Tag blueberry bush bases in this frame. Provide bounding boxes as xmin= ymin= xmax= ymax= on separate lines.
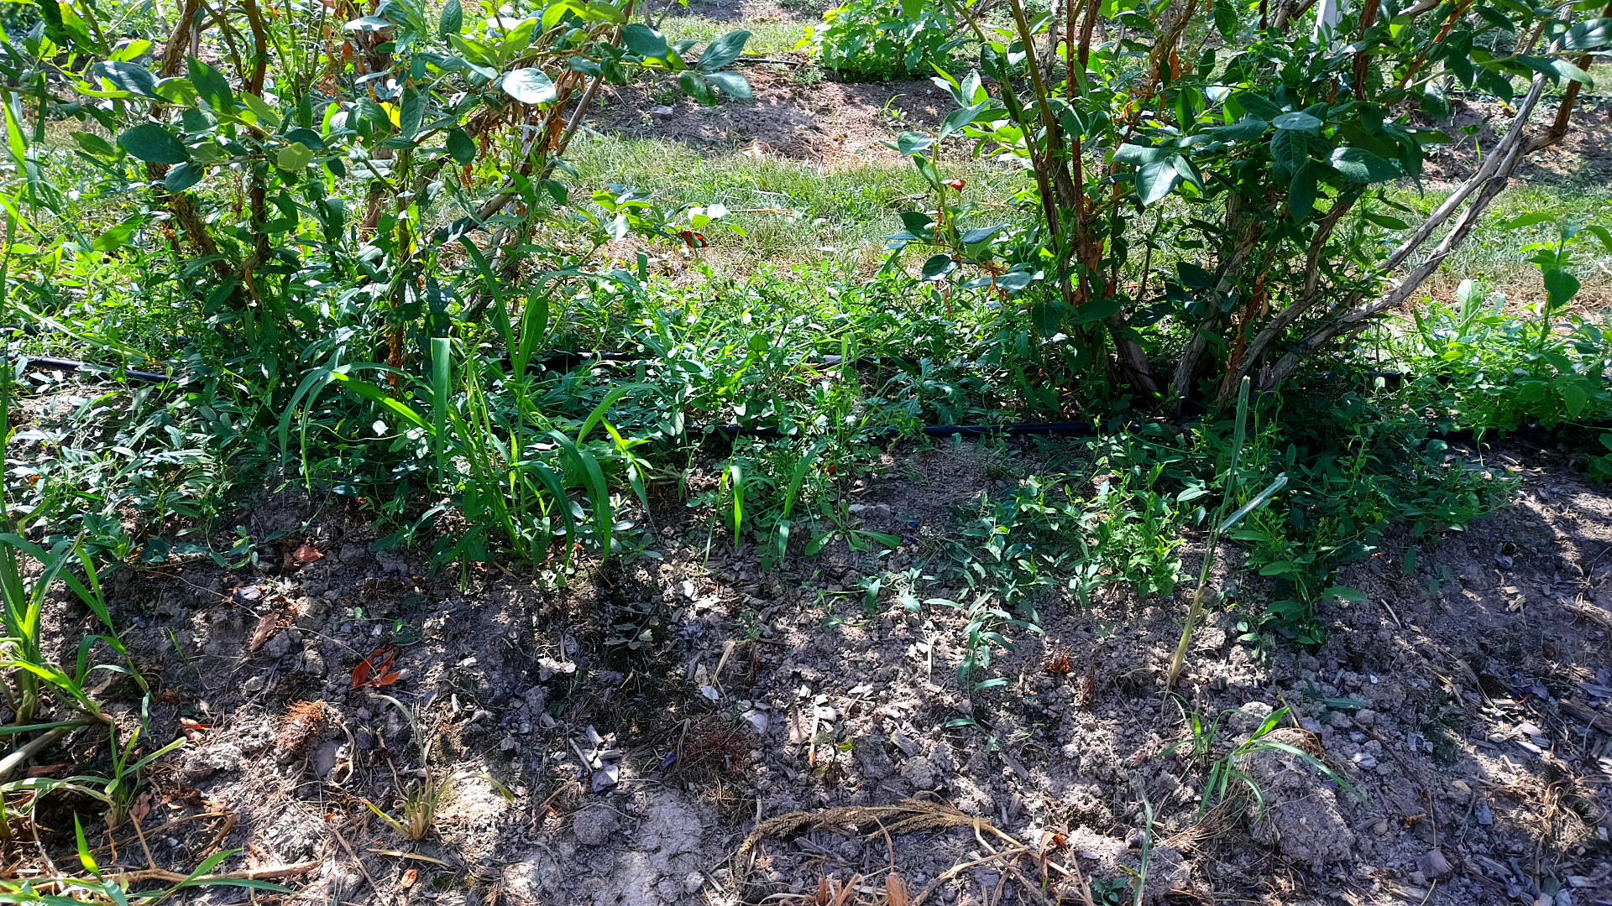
xmin=1017 ymin=233 xmax=1445 ymax=504
xmin=149 ymin=195 xmax=538 ymax=496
